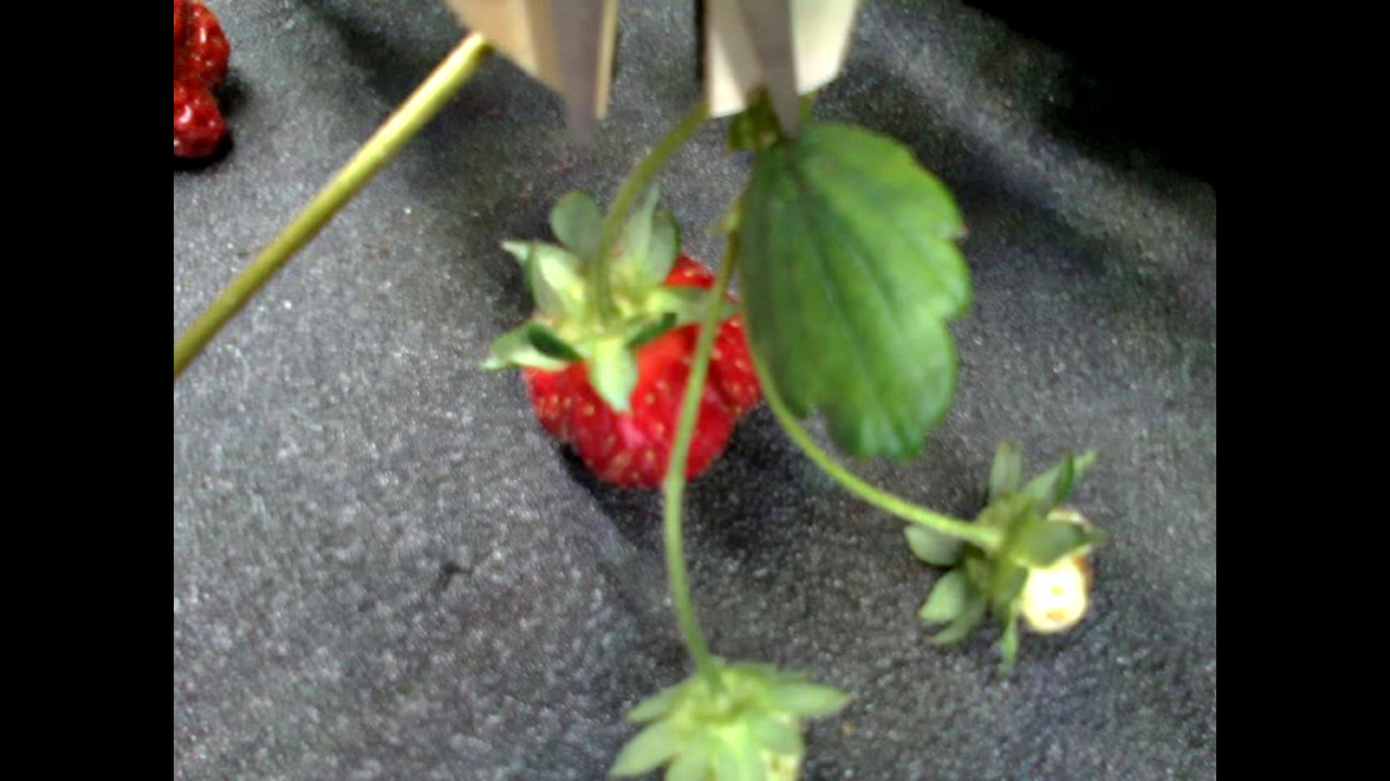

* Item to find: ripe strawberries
[506,269,790,505]
[172,0,236,81]
[170,95,242,180]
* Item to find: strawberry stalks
[913,490,1022,571]
[659,576,747,712]
[590,99,680,386]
